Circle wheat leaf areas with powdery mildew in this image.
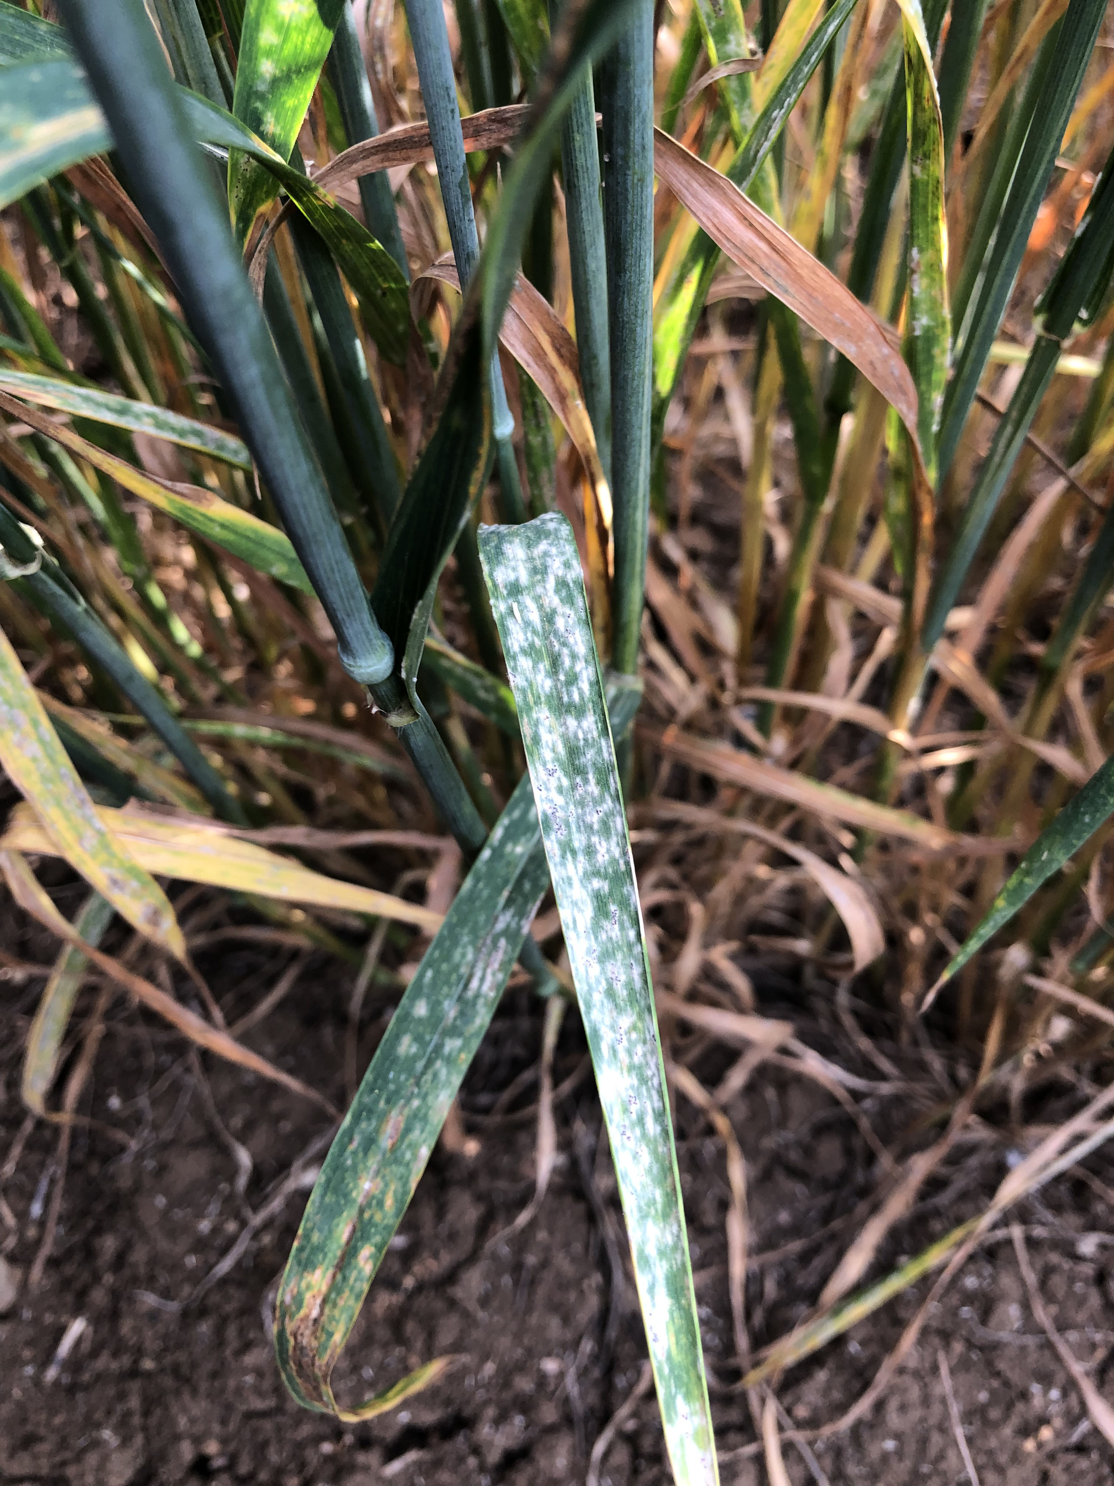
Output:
[896,140,972,390]
[458,502,784,1477]
[16,361,258,480]
[231,15,307,175]
[178,781,604,1422]
[6,683,200,945]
